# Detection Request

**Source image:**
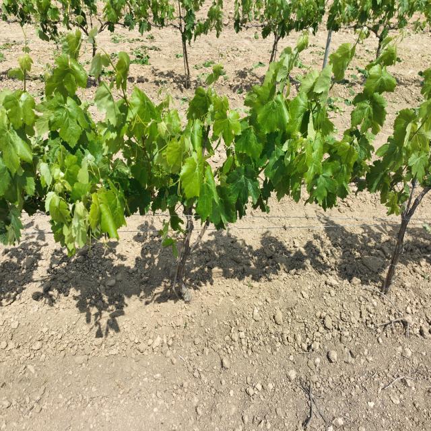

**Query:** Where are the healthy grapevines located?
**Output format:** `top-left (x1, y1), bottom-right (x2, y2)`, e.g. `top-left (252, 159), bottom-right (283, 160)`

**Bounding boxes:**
top-left (286, 35), bottom-right (431, 311)
top-left (35, 42), bottom-right (290, 318)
